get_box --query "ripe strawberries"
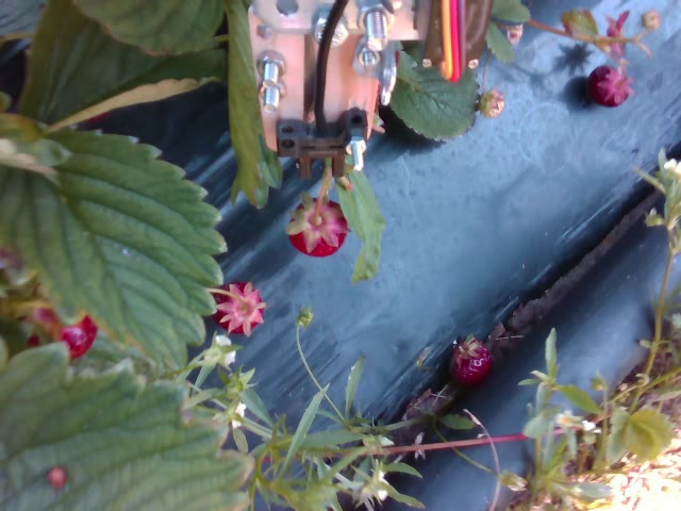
[217,285,272,333]
[589,68,636,101]
[287,196,348,256]
[25,297,100,358]
[456,337,497,378]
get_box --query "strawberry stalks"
[306,164,331,228]
[200,282,258,321]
